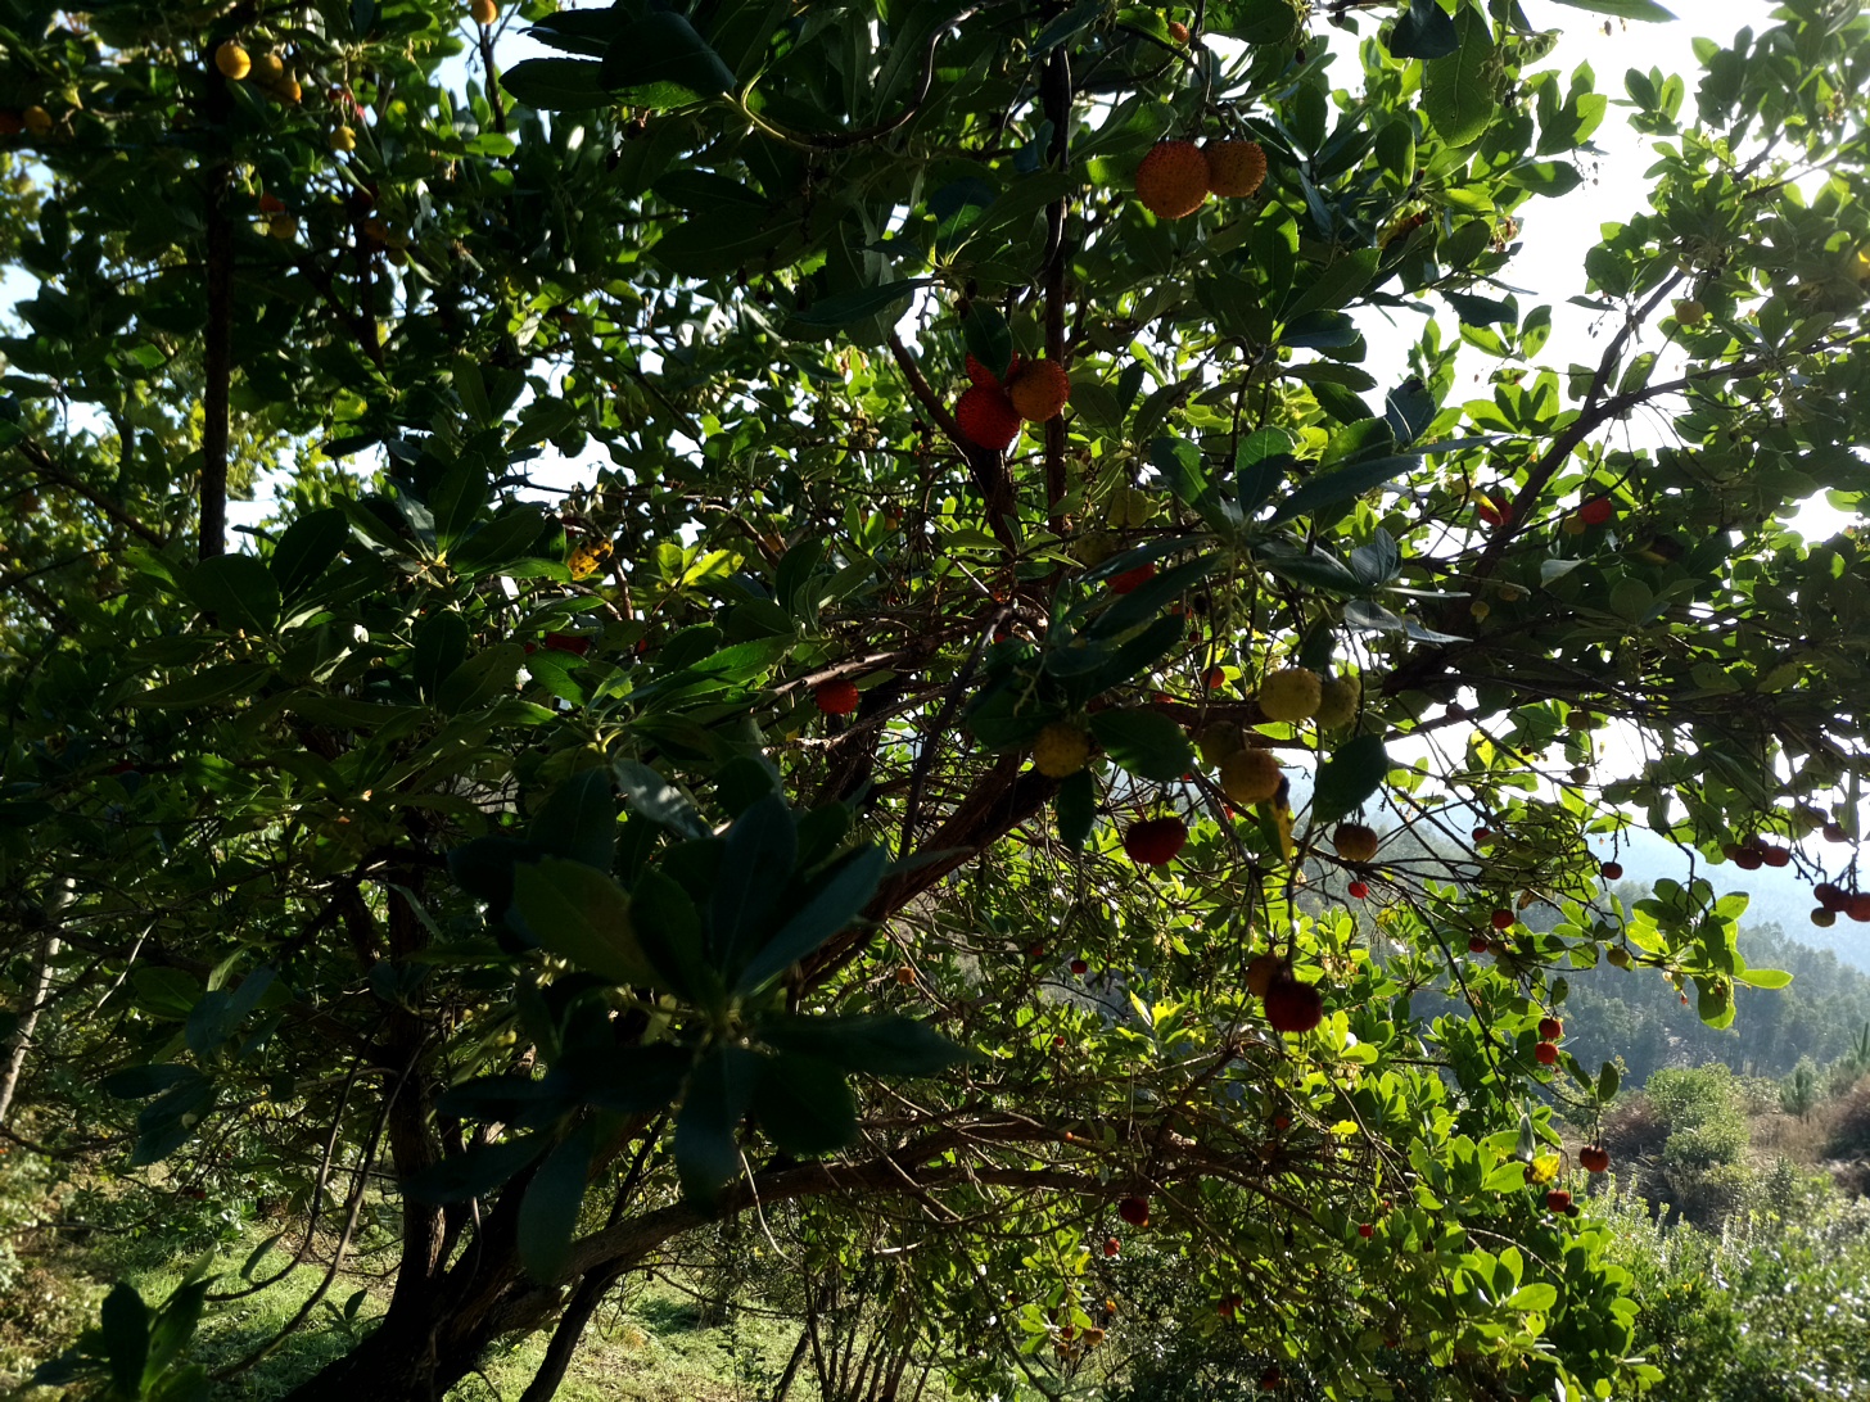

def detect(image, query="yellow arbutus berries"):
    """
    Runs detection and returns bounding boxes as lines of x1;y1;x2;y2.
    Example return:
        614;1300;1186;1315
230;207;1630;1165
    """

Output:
1068;1348;1079;1359
1034;722;1089;778
897;966;914;984
1203;721;1247;765
1334;822;1376;860
216;44;251;81
1137;141;1207;218
275;78;303;107
472;0;497;24
1083;1329;1101;1348
251;51;284;87
1222;749;1281;806
1092;1329;1105;1340
1242;952;1287;992
1202;142;1267;197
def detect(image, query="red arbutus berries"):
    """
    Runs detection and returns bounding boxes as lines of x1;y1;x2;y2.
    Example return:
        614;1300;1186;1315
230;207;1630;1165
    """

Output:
1229;1293;1242;1305
815;679;859;713
1200;664;1226;689
1579;1144;1609;1174
1118;1195;1151;1226
1054;1037;1065;1046
1763;844;1790;867
1581;496;1614;526
1070;959;1088;973
1735;848;1761;870
258;190;284;214
1104;557;1156;593
1011;358;1069;419
1601;861;1623;879
1124;820;1159;863
1823;890;1845;912
1030;944;1044;955
1539;1018;1562;1038
1468;937;1487;953
1272;1114;1289;1132
1152;688;1174;705
964;344;1019;388
1472;827;1490;841
1266;980;1326;1032
1358;1223;1373;1238
1262;1376;1276;1388
1060;1326;1075;1338
1813;883;1836;902
1480;497;1513;527
1148;818;1186;864
1545;1189;1571;1212
1490;909;1514;929
1216;1299;1232;1315
1101;1236;1121;1254
1533;1040;1559;1062
957;387;1022;447
1349;881;1368;898
1846;888;1870;922
1056;1343;1069;1356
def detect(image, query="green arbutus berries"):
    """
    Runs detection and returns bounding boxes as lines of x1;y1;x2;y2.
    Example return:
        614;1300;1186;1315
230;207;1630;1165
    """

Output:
1498;585;1519;602
1810;907;1836;927
1721;843;1740;860
1103;487;1148;527
334;125;358;150
1073;528;1120;562
1487;939;1506;955
1469;600;1490;617
1564;517;1587;535
1256;668;1320;719
1566;710;1592;732
1309;680;1358;728
1571;766;1590;786
1607;948;1631;967
270;214;297;238
1677;302;1705;324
